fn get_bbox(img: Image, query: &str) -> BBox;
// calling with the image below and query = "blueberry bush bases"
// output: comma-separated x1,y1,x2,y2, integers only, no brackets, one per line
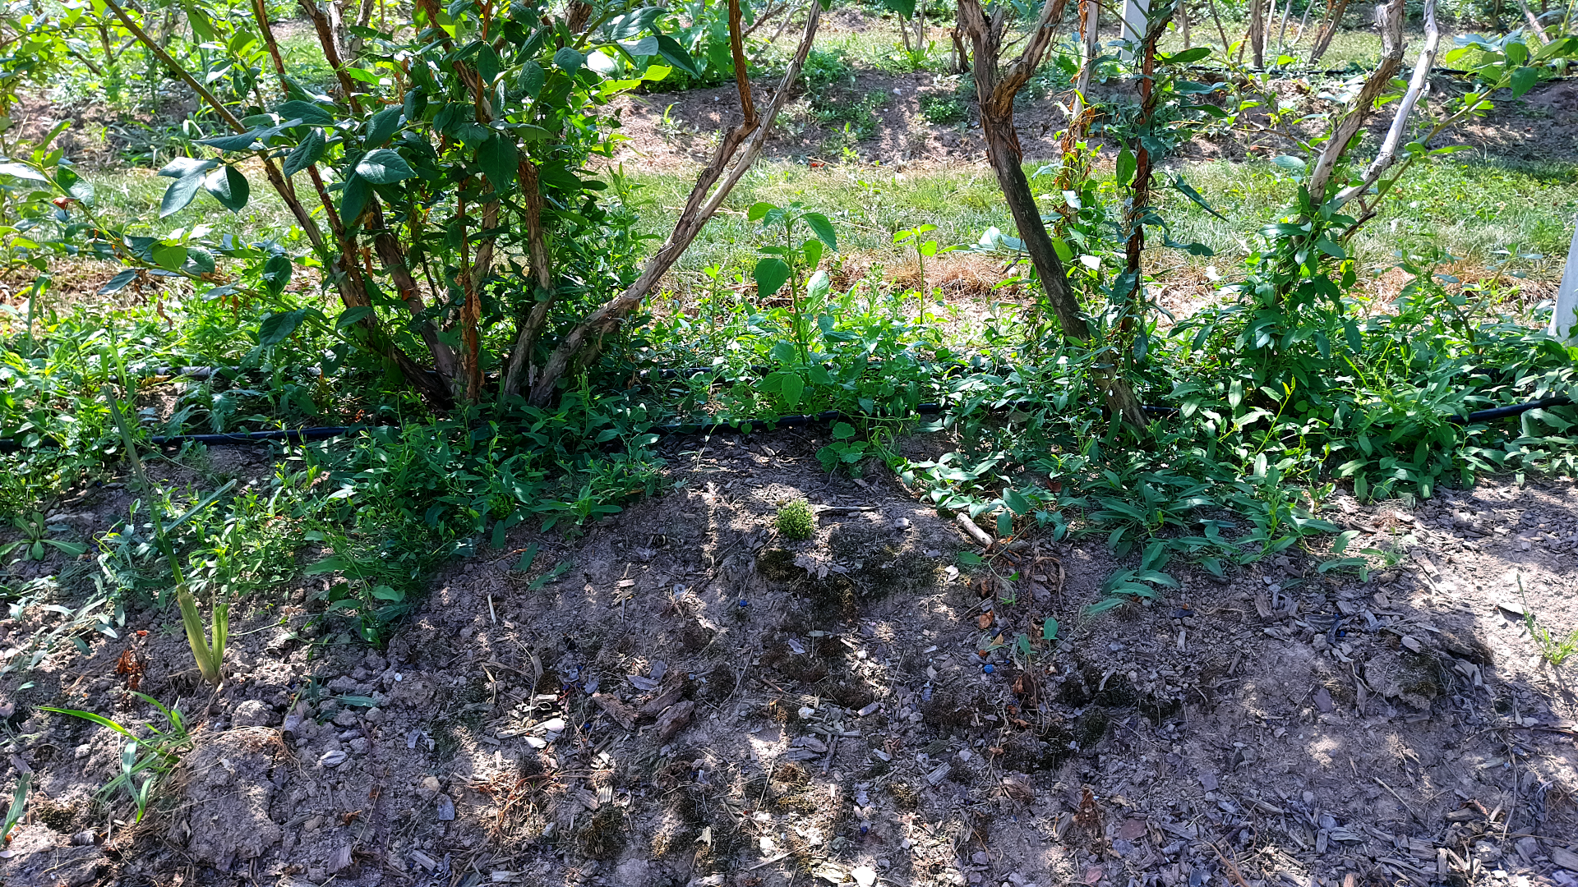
982,183,1395,519
286,209,715,508
897,27,1001,83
